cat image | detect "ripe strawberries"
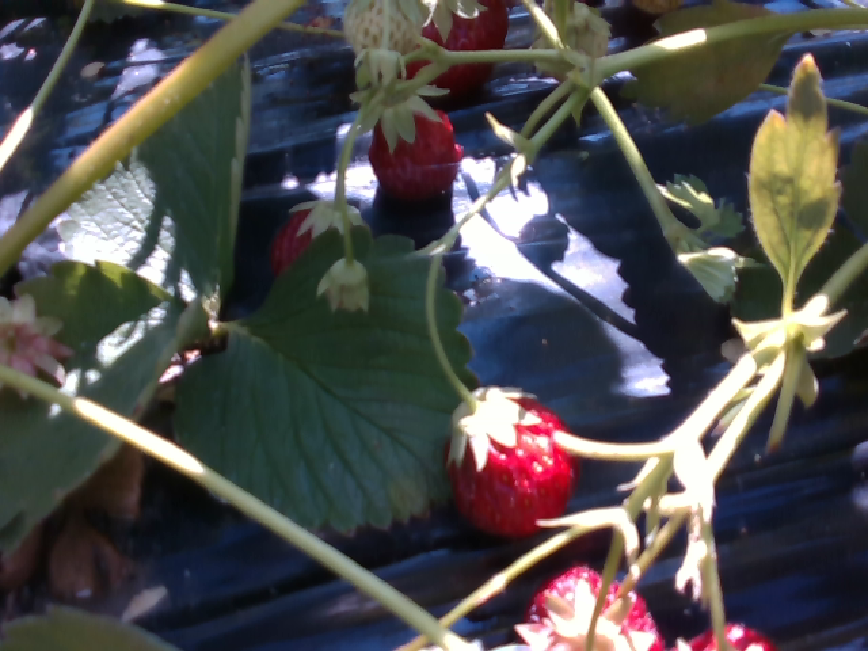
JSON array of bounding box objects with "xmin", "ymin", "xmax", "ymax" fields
[
  {"xmin": 548, "ymin": 583, "xmax": 656, "ymax": 651},
  {"xmin": 375, "ymin": 109, "xmax": 462, "ymax": 193},
  {"xmin": 686, "ymin": 621, "xmax": 772, "ymax": 651},
  {"xmin": 275, "ymin": 201, "xmax": 373, "ymax": 290},
  {"xmin": 400, "ymin": 0, "xmax": 502, "ymax": 89},
  {"xmin": 453, "ymin": 395, "xmax": 583, "ymax": 529}
]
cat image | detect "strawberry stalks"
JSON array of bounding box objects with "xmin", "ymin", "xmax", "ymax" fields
[
  {"xmin": 327, "ymin": 102, "xmax": 372, "ymax": 227},
  {"xmin": 421, "ymin": 281, "xmax": 482, "ymax": 442},
  {"xmin": 703, "ymin": 528, "xmax": 726, "ymax": 651},
  {"xmin": 583, "ymin": 510, "xmax": 644, "ymax": 651}
]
